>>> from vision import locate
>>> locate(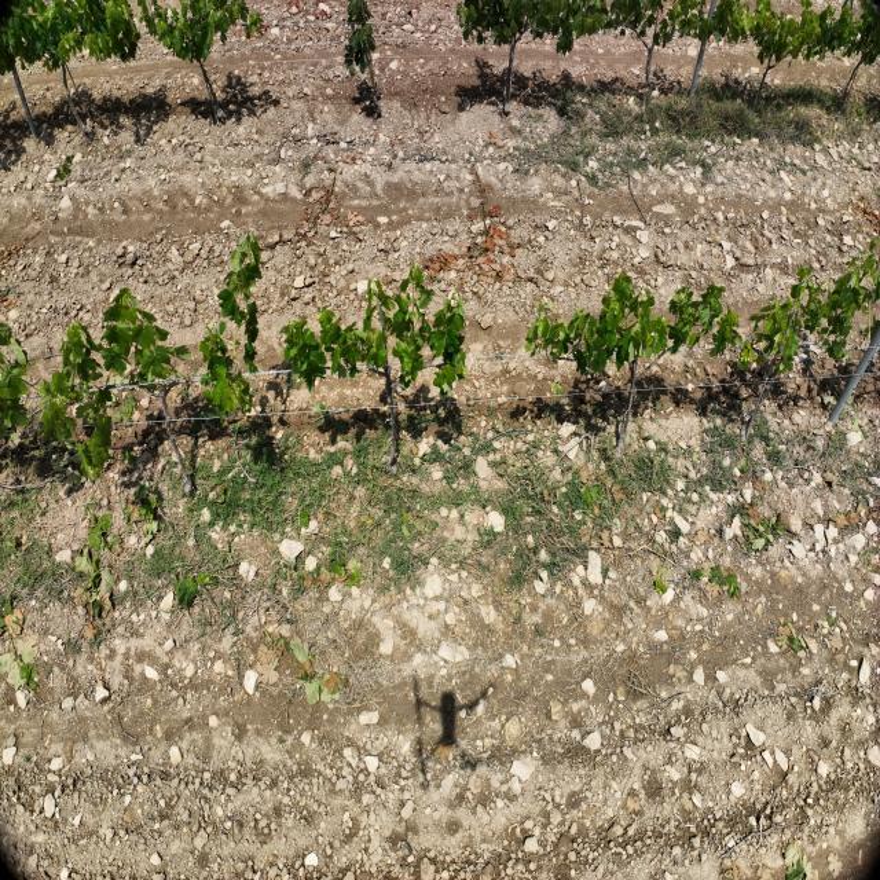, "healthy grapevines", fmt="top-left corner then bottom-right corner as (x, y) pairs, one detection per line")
(278, 256), (477, 481)
(517, 263), (726, 477)
(733, 247), (880, 443)
(34, 227), (269, 513)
